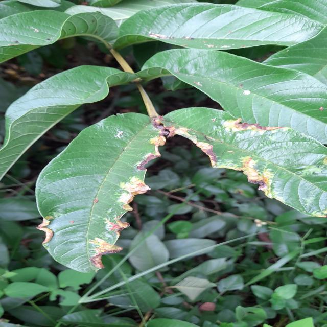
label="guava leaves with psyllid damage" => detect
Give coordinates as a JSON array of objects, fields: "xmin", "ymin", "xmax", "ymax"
[
  {"xmin": 28, "ymin": 115, "xmax": 165, "ymax": 286},
  {"xmin": 156, "ymin": 101, "xmax": 327, "ymax": 231}
]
